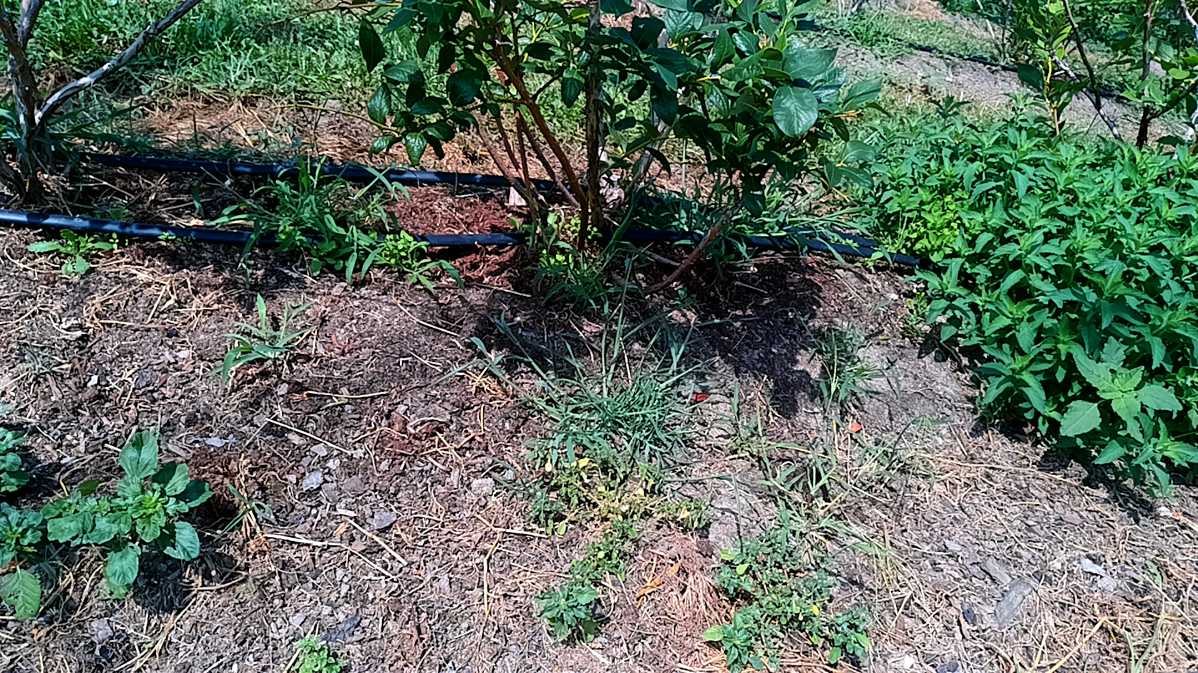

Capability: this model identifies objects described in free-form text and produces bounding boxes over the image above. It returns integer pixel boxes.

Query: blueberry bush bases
[467,97,685,301]
[1,70,87,234]
[1051,54,1198,238]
